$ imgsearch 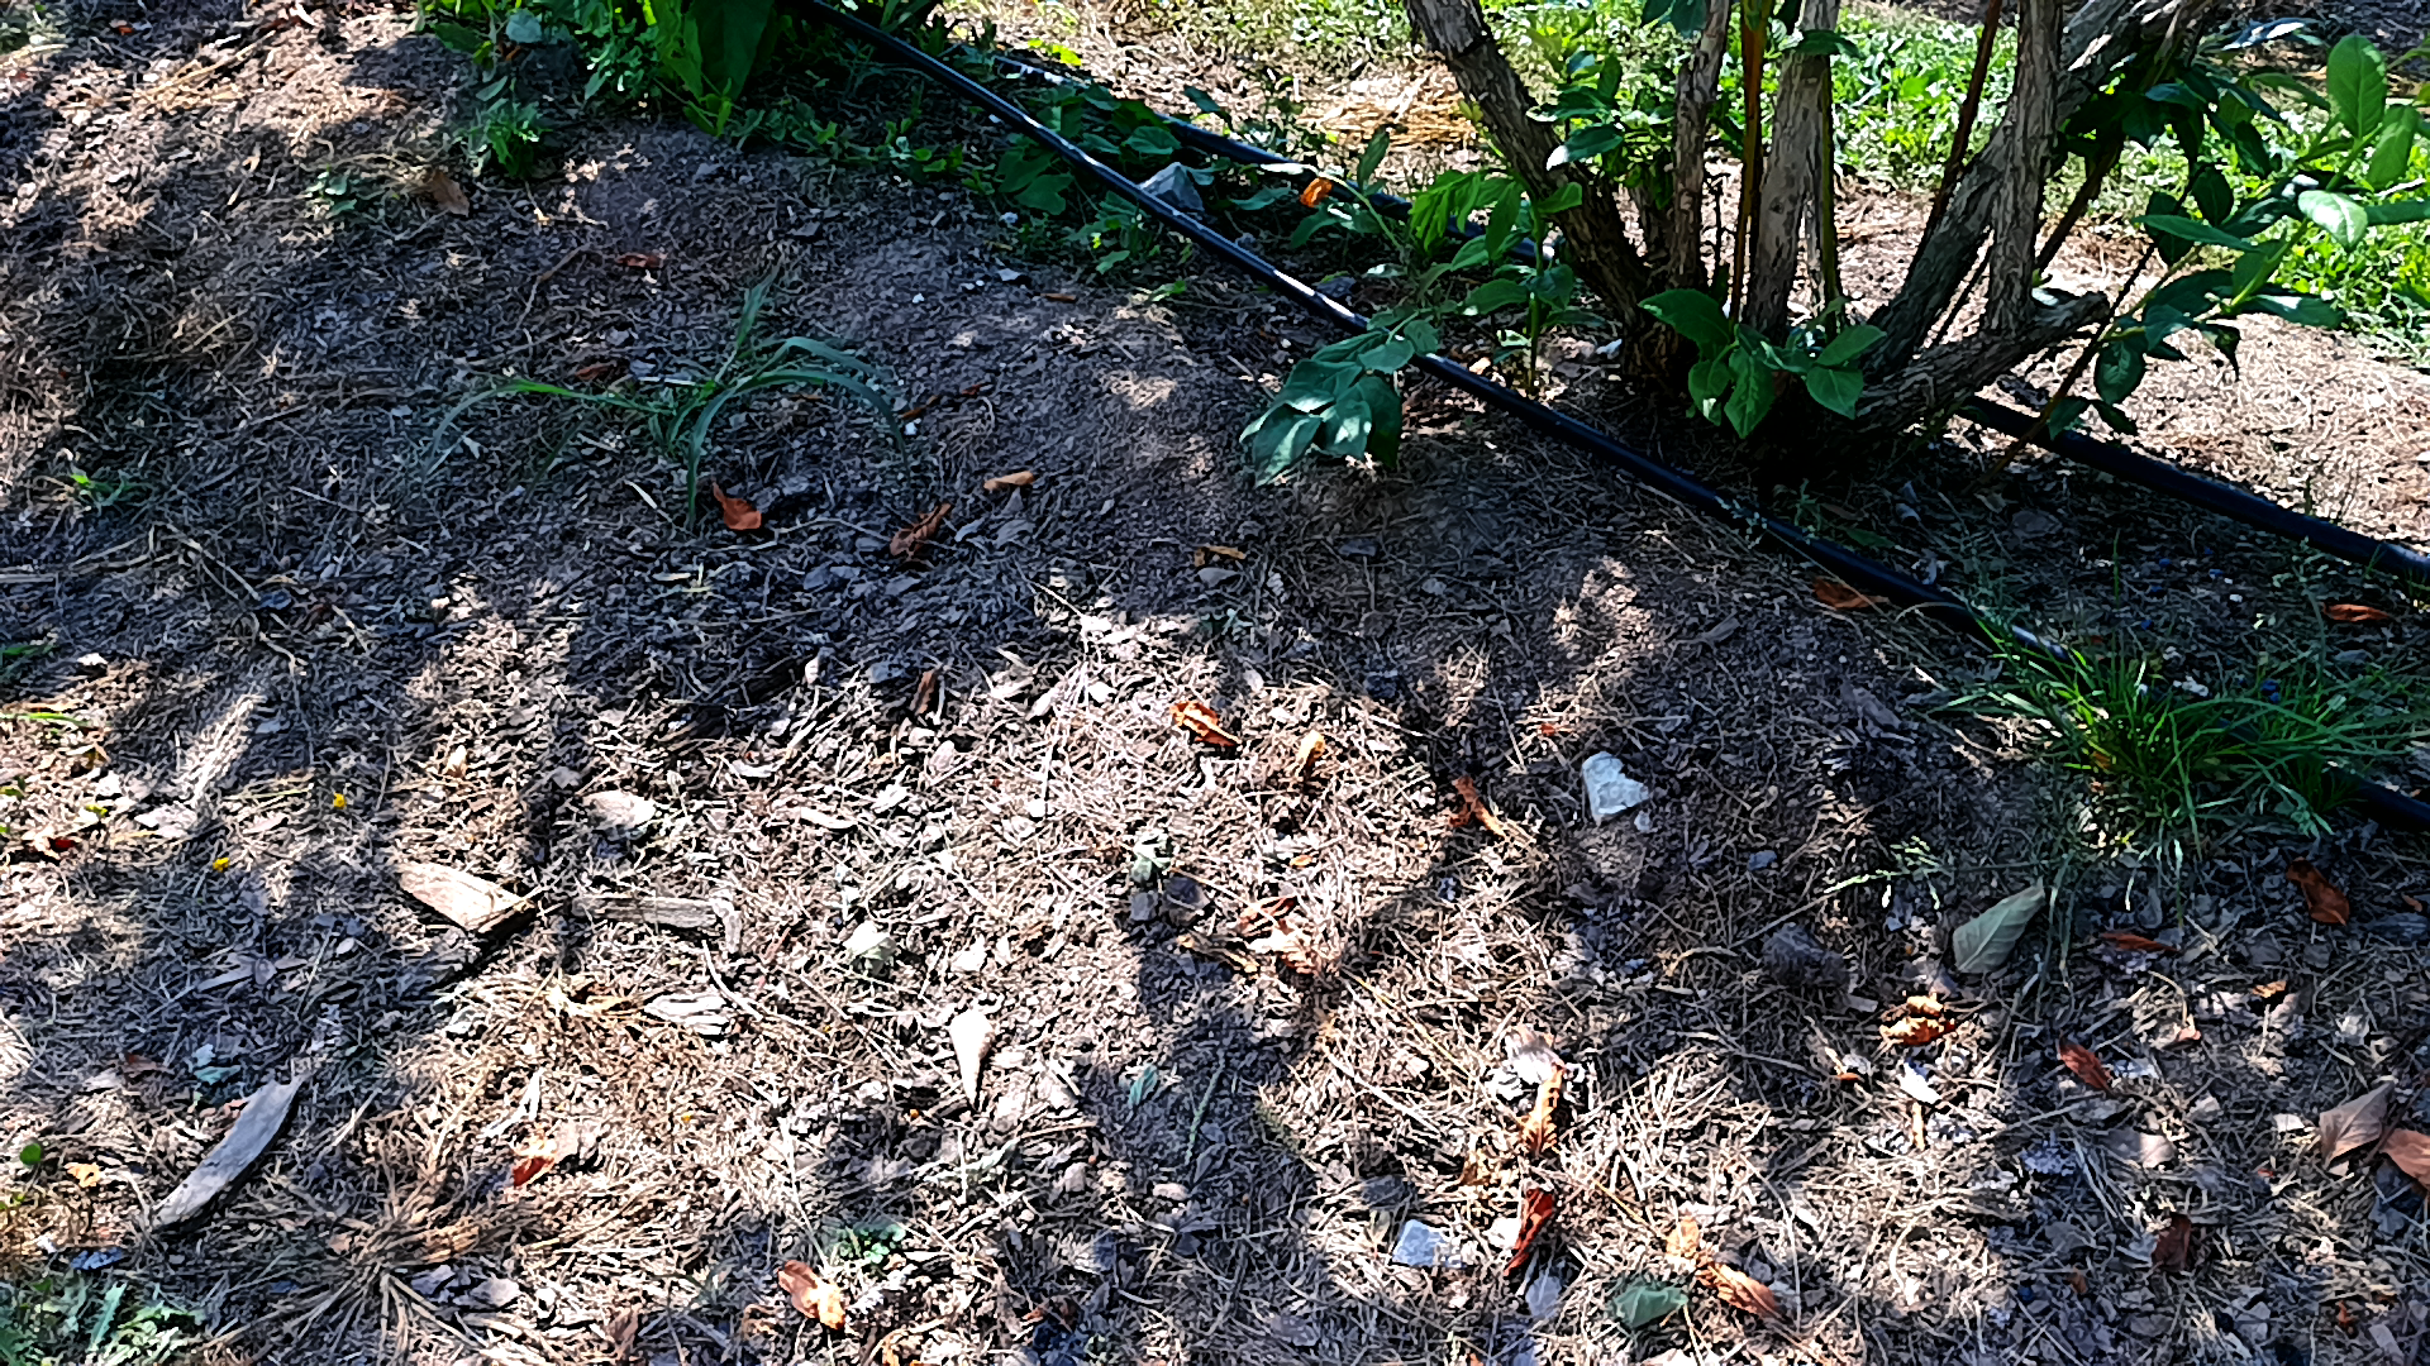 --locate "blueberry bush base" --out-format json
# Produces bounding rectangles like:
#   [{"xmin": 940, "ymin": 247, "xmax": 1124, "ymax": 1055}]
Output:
[{"xmin": 1438, "ymin": 65, "xmax": 2128, "ymax": 659}]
